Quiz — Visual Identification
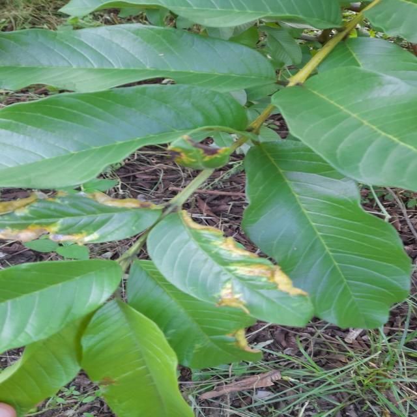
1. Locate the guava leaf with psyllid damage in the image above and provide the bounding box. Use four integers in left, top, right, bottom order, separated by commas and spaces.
145, 201, 328, 327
